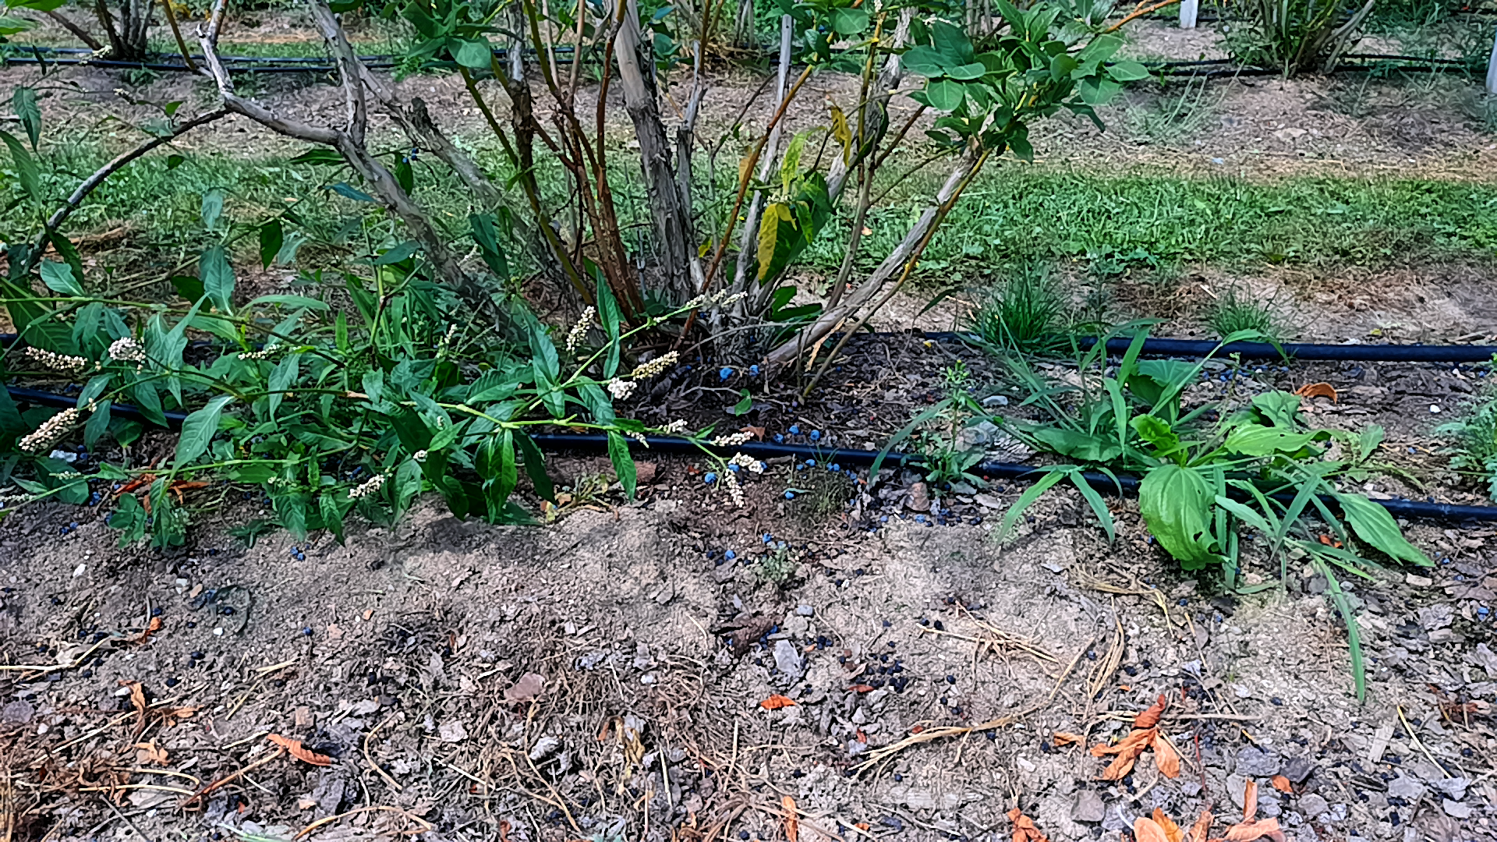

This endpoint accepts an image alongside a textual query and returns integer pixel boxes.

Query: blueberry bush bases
[79,19,167,80]
[1239,17,1361,94]
[359,130,944,522]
